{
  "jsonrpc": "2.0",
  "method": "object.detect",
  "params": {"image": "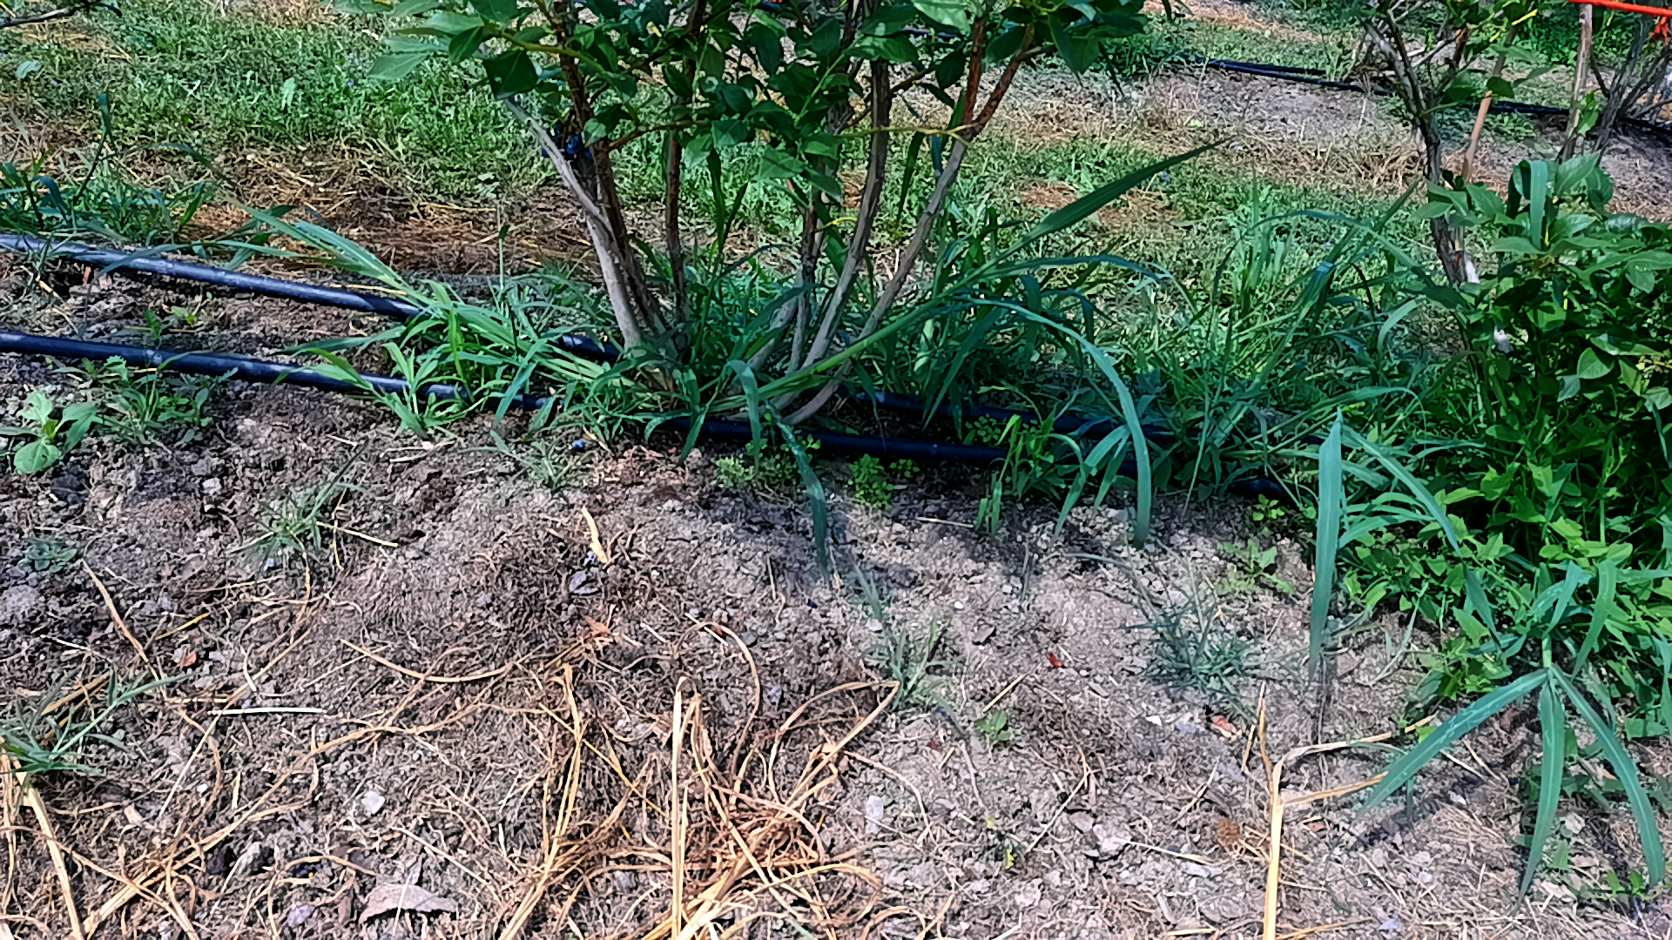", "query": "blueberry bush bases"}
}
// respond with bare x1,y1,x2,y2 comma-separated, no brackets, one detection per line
1315,29,1397,97
543,205,973,495
1566,49,1668,148
1376,146,1660,584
